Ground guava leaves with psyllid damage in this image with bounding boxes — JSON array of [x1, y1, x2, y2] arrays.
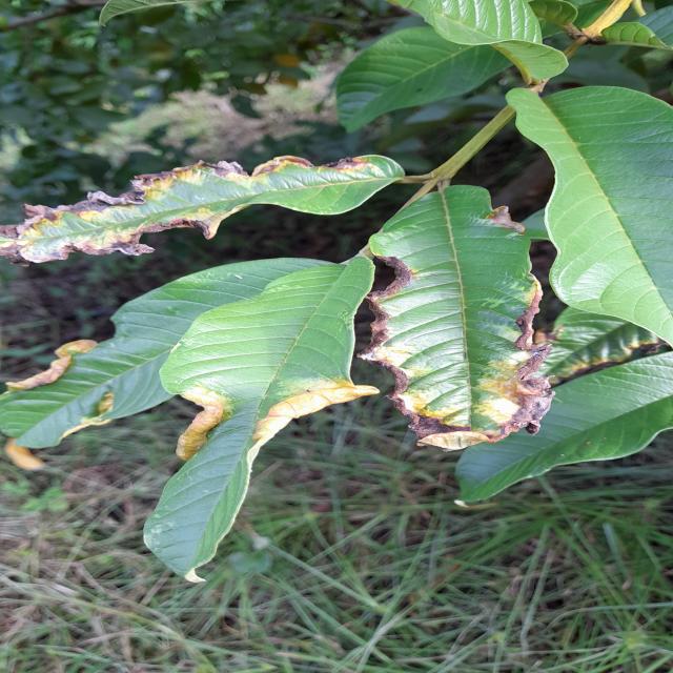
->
[[3, 117, 427, 281], [154, 253, 402, 600], [369, 181, 553, 467]]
